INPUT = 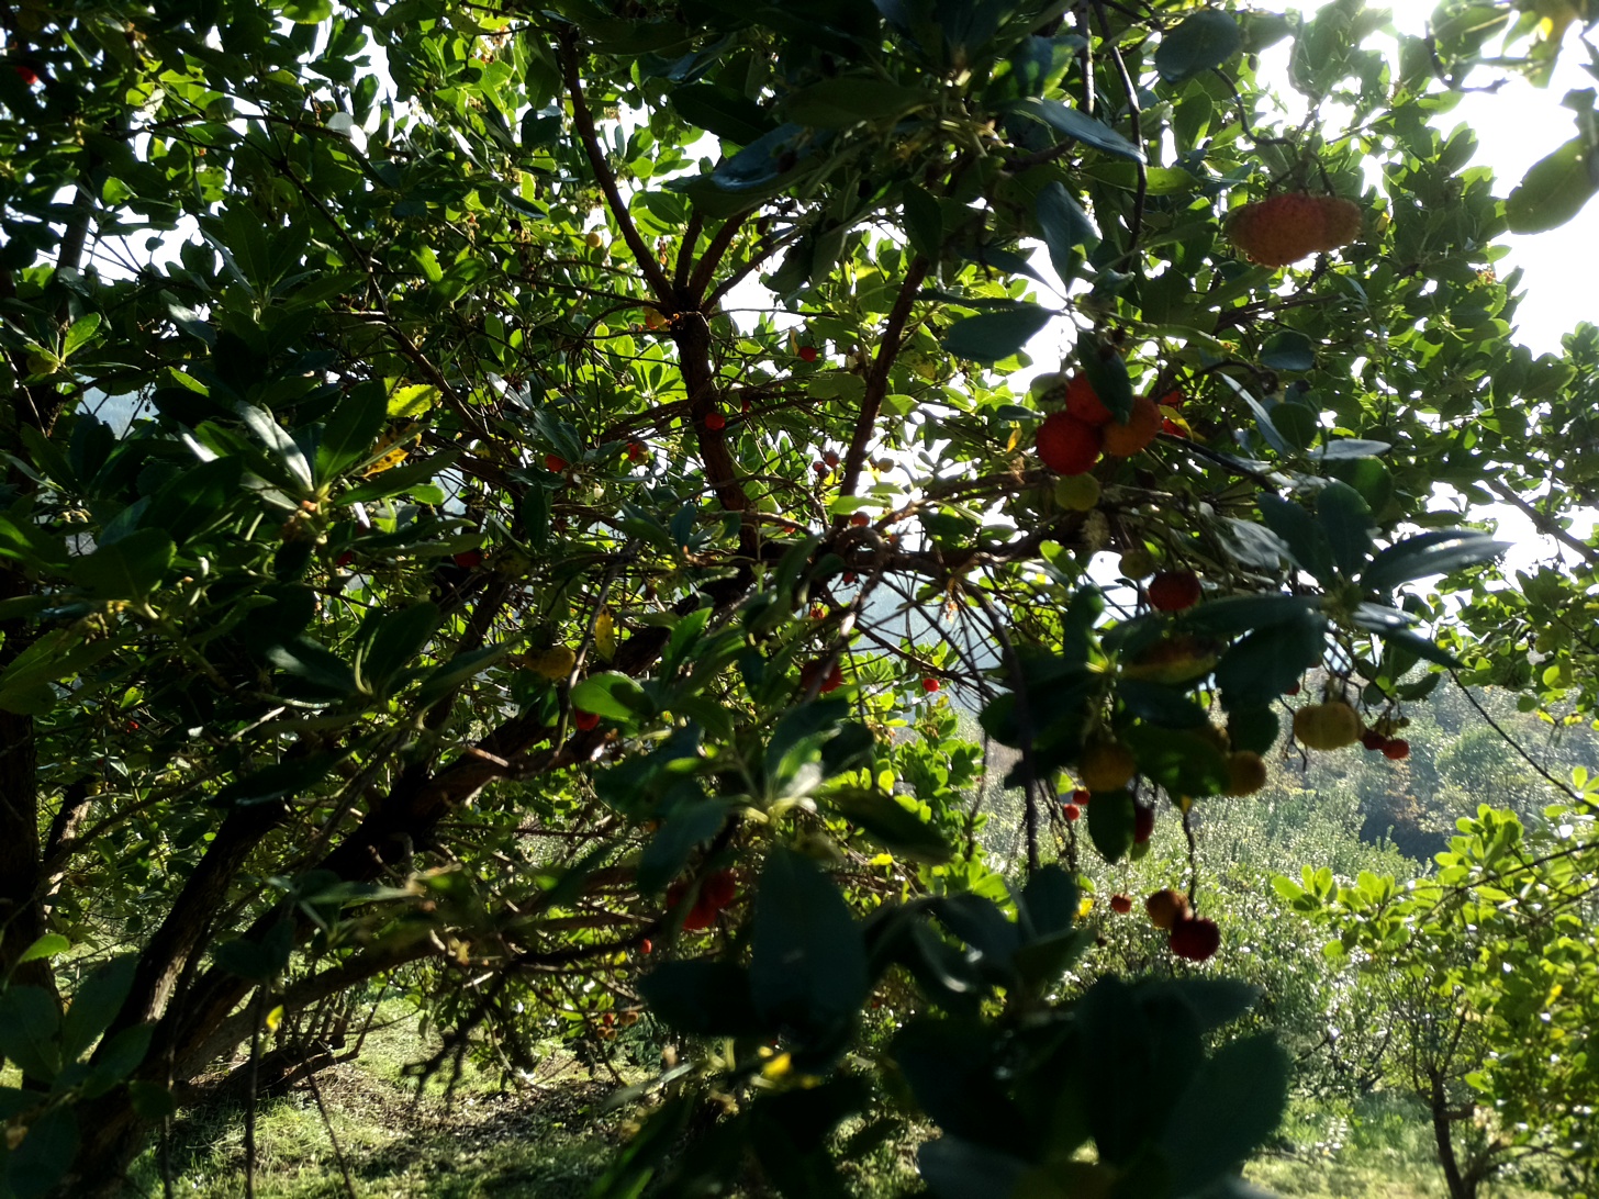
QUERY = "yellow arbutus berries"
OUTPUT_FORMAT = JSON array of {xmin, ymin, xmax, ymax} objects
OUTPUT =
[
  {"xmin": 1239, "ymin": 193, "xmax": 1318, "ymax": 267},
  {"xmin": 607, "ymin": 1029, "xmax": 617, "ymax": 1040},
  {"xmin": 1219, "ymin": 750, "xmax": 1266, "ymax": 797},
  {"xmin": 1080, "ymin": 741, "xmax": 1135, "ymax": 791},
  {"xmin": 540, "ymin": 645, "xmax": 576, "ymax": 680},
  {"xmin": 1146, "ymin": 890, "xmax": 1187, "ymax": 928},
  {"xmin": 627, "ymin": 1013, "xmax": 637, "ymax": 1022},
  {"xmin": 595, "ymin": 1026, "xmax": 608, "ymax": 1038},
  {"xmin": 651, "ymin": 311, "xmax": 668, "ymax": 326},
  {"xmin": 1304, "ymin": 197, "xmax": 1362, "ymax": 247}
]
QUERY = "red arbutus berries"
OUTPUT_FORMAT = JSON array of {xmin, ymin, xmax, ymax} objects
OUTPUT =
[
  {"xmin": 1111, "ymin": 893, "xmax": 1132, "ymax": 914},
  {"xmin": 800, "ymin": 346, "xmax": 817, "ymax": 362},
  {"xmin": 851, "ymin": 511, "xmax": 870, "ymax": 526},
  {"xmin": 1062, "ymin": 804, "xmax": 1081, "ymax": 821},
  {"xmin": 680, "ymin": 897, "xmax": 717, "ymax": 930},
  {"xmin": 639, "ymin": 938, "xmax": 652, "ymax": 954},
  {"xmin": 1103, "ymin": 390, "xmax": 1159, "ymax": 458},
  {"xmin": 1063, "ymin": 371, "xmax": 1108, "ymax": 422},
  {"xmin": 1385, "ymin": 738, "xmax": 1410, "ymax": 761},
  {"xmin": 604, "ymin": 1014, "xmax": 614, "ymax": 1024},
  {"xmin": 801, "ymin": 657, "xmax": 841, "ymax": 691},
  {"xmin": 574, "ymin": 708, "xmax": 600, "ymax": 732},
  {"xmin": 455, "ymin": 547, "xmax": 482, "ymax": 567},
  {"xmin": 813, "ymin": 461, "xmax": 825, "ymax": 470},
  {"xmin": 1034, "ymin": 408, "xmax": 1100, "ymax": 474},
  {"xmin": 1362, "ymin": 724, "xmax": 1386, "ymax": 751},
  {"xmin": 825, "ymin": 452, "xmax": 839, "ymax": 466},
  {"xmin": 1168, "ymin": 918, "xmax": 1218, "ymax": 959},
  {"xmin": 15, "ymin": 59, "xmax": 39, "ymax": 85},
  {"xmin": 543, "ymin": 452, "xmax": 565, "ymax": 471},
  {"xmin": 924, "ymin": 677, "xmax": 939, "ymax": 692},
  {"xmin": 705, "ymin": 412, "xmax": 726, "ymax": 430},
  {"xmin": 1149, "ymin": 568, "xmax": 1197, "ymax": 615}
]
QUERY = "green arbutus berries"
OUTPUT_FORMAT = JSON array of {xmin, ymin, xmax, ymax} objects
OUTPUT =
[
  {"xmin": 1294, "ymin": 700, "xmax": 1359, "ymax": 752},
  {"xmin": 1055, "ymin": 468, "xmax": 1099, "ymax": 515},
  {"xmin": 586, "ymin": 232, "xmax": 601, "ymax": 248},
  {"xmin": 876, "ymin": 458, "xmax": 893, "ymax": 473}
]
